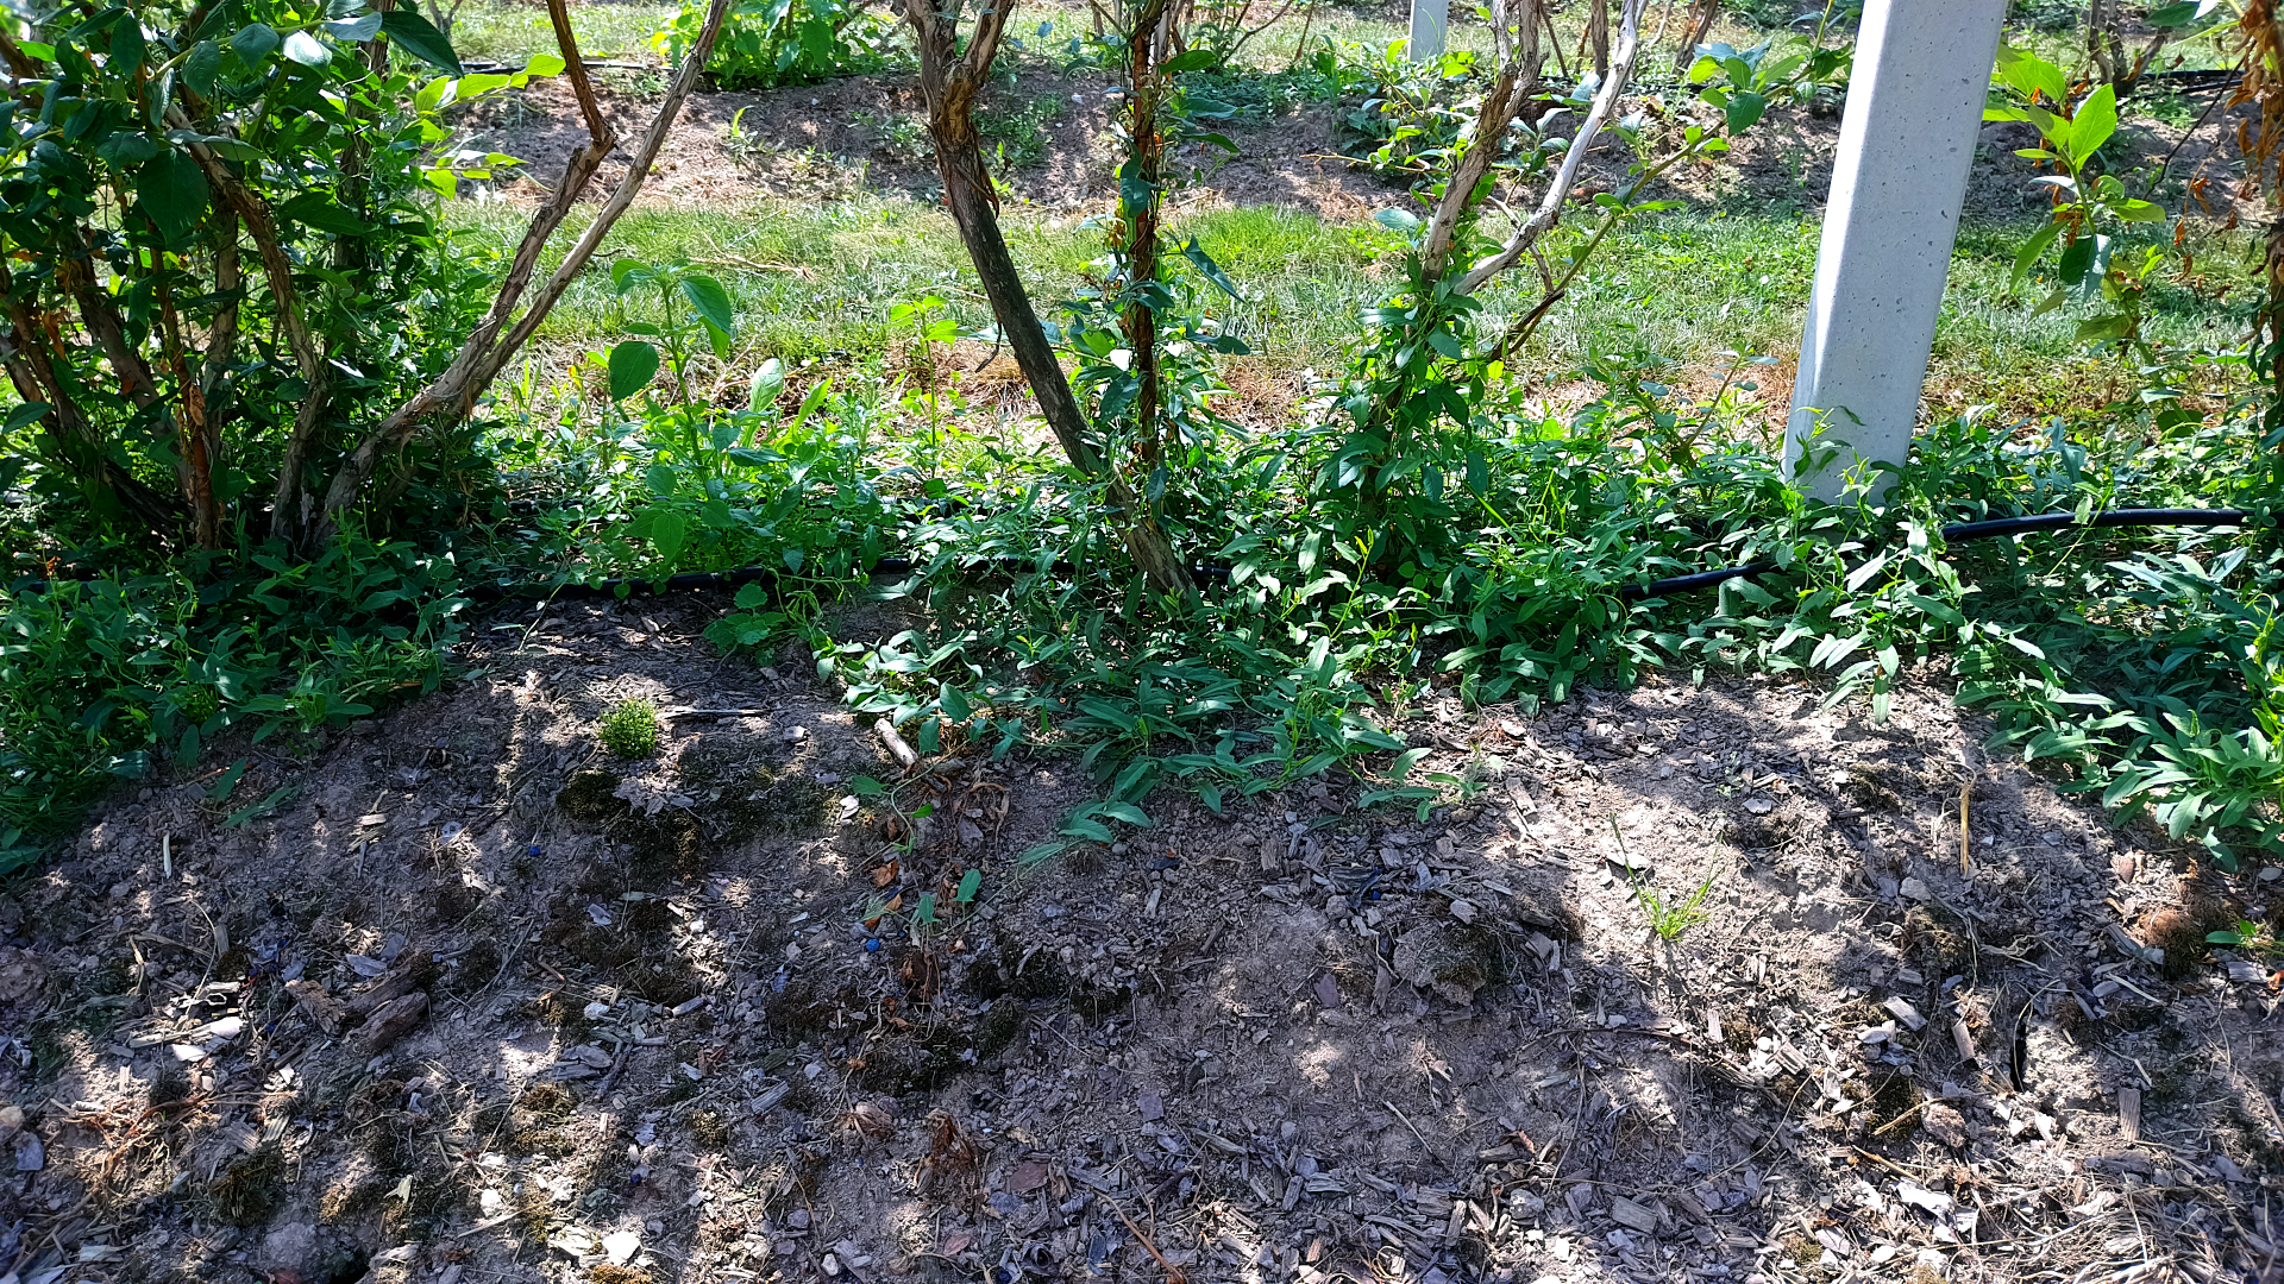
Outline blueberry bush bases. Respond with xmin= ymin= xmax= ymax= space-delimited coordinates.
xmin=18 ymin=288 xmax=581 ymax=701
xmin=2078 ymin=36 xmax=2177 ymax=115
xmin=942 ymin=240 xmax=1580 ymax=723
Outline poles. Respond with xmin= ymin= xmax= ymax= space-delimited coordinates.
xmin=1400 ymin=12 xmax=1452 ymax=92
xmin=1777 ymin=17 xmax=2013 ymax=529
